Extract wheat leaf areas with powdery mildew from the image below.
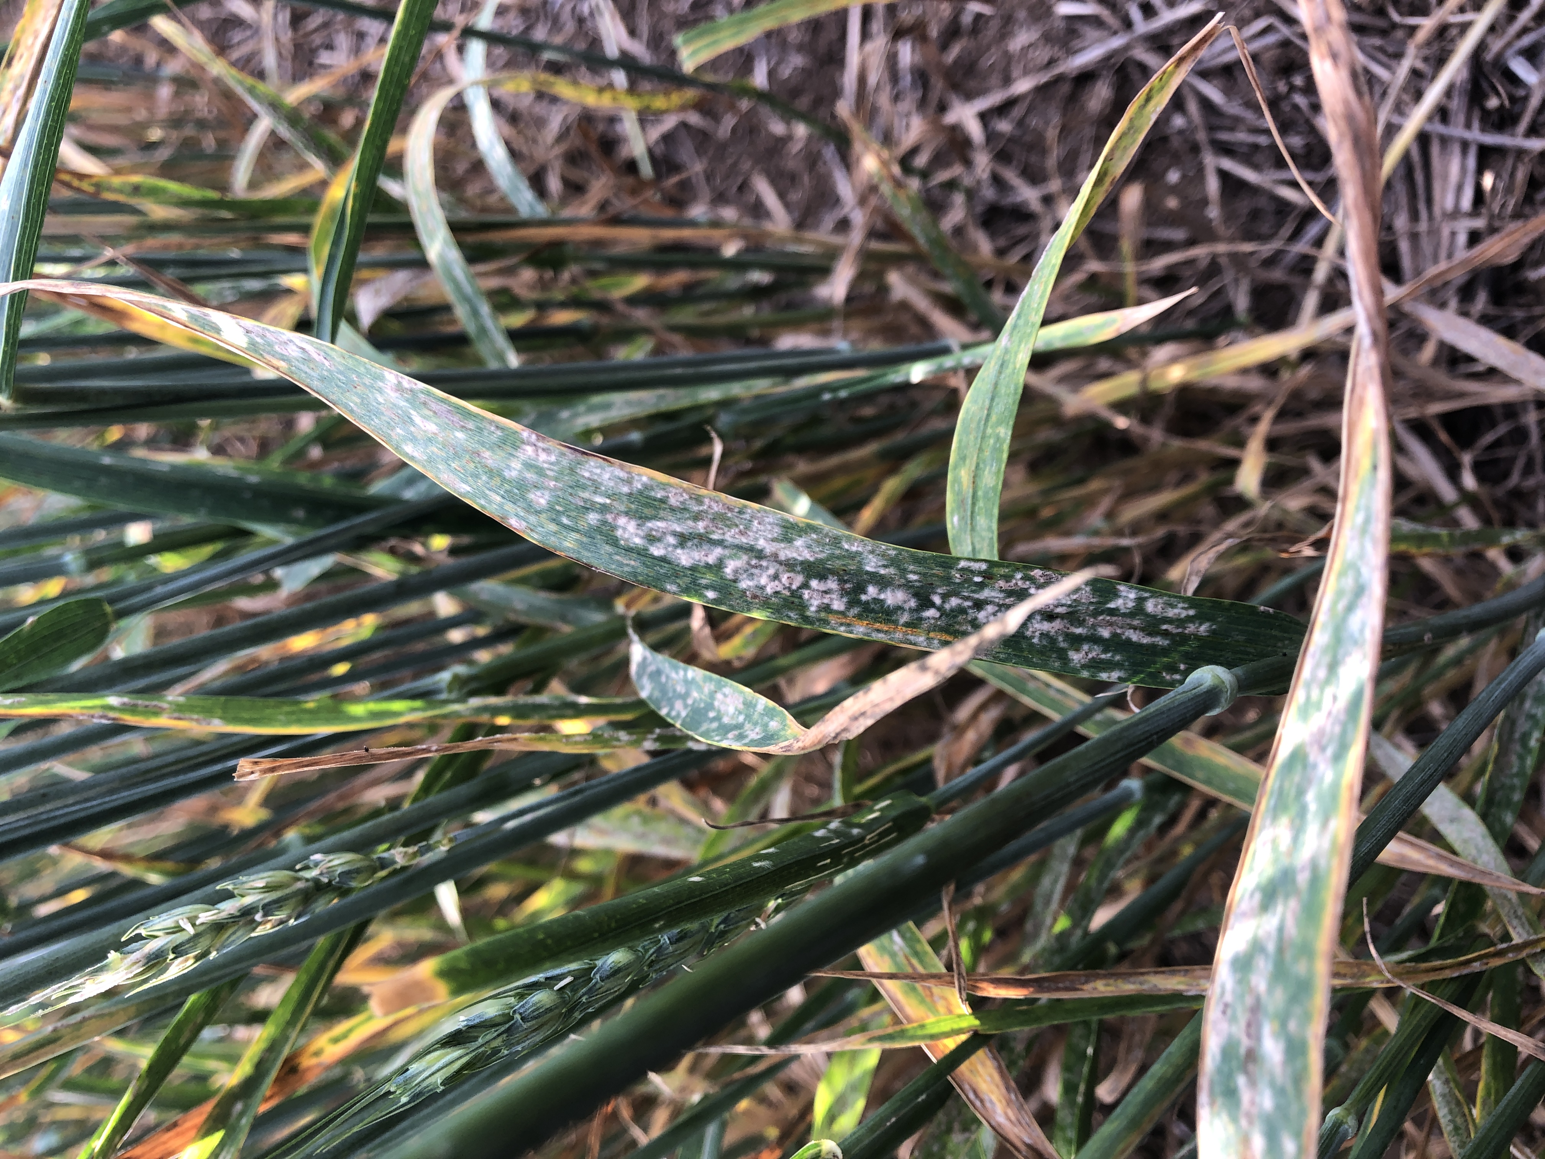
[625,637,801,761]
[1187,286,1402,1159]
[203,305,1174,686]
[459,16,541,212]
[410,139,518,373]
